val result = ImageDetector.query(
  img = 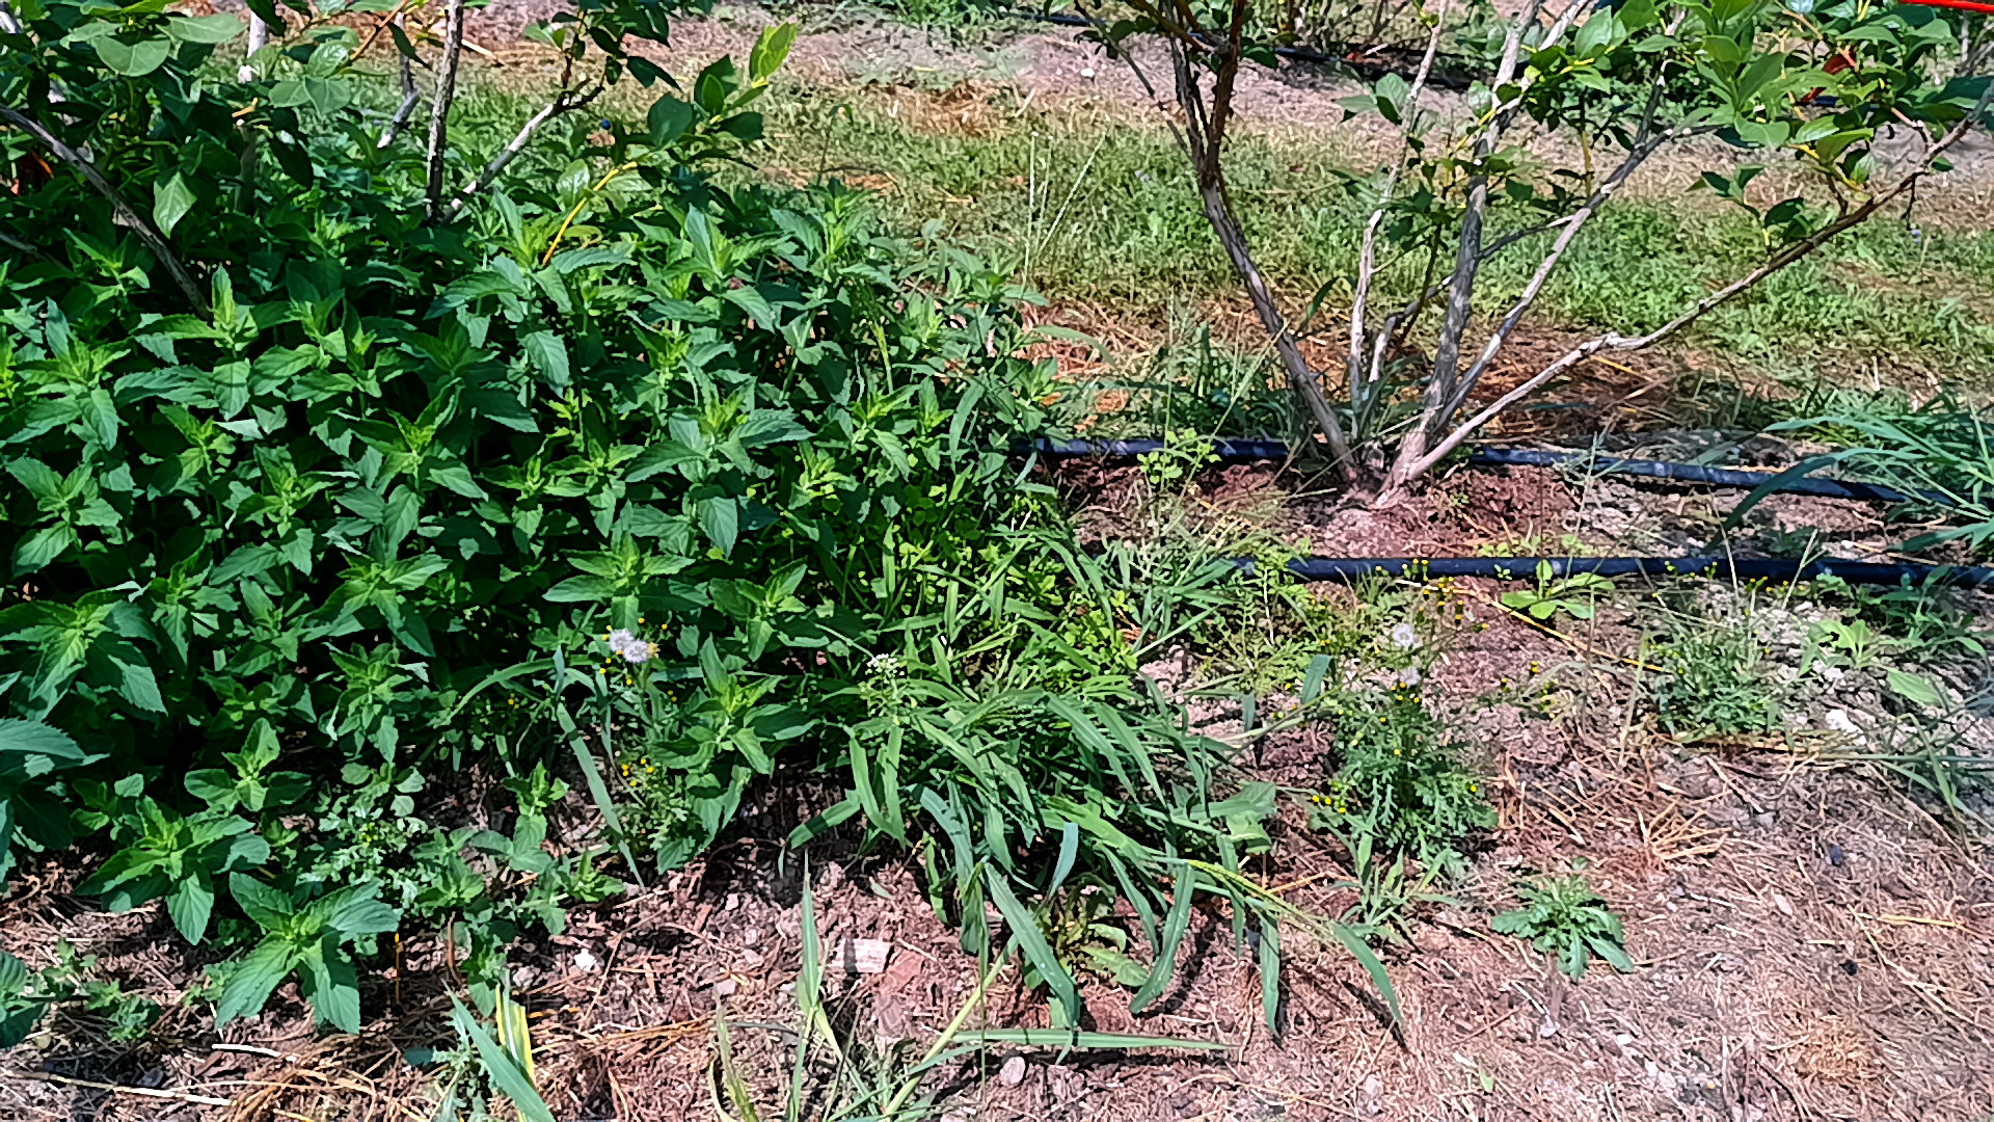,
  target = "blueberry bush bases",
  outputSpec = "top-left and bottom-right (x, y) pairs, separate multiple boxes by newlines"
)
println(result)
(1203, 269), (1601, 563)
(22, 67), (569, 379)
